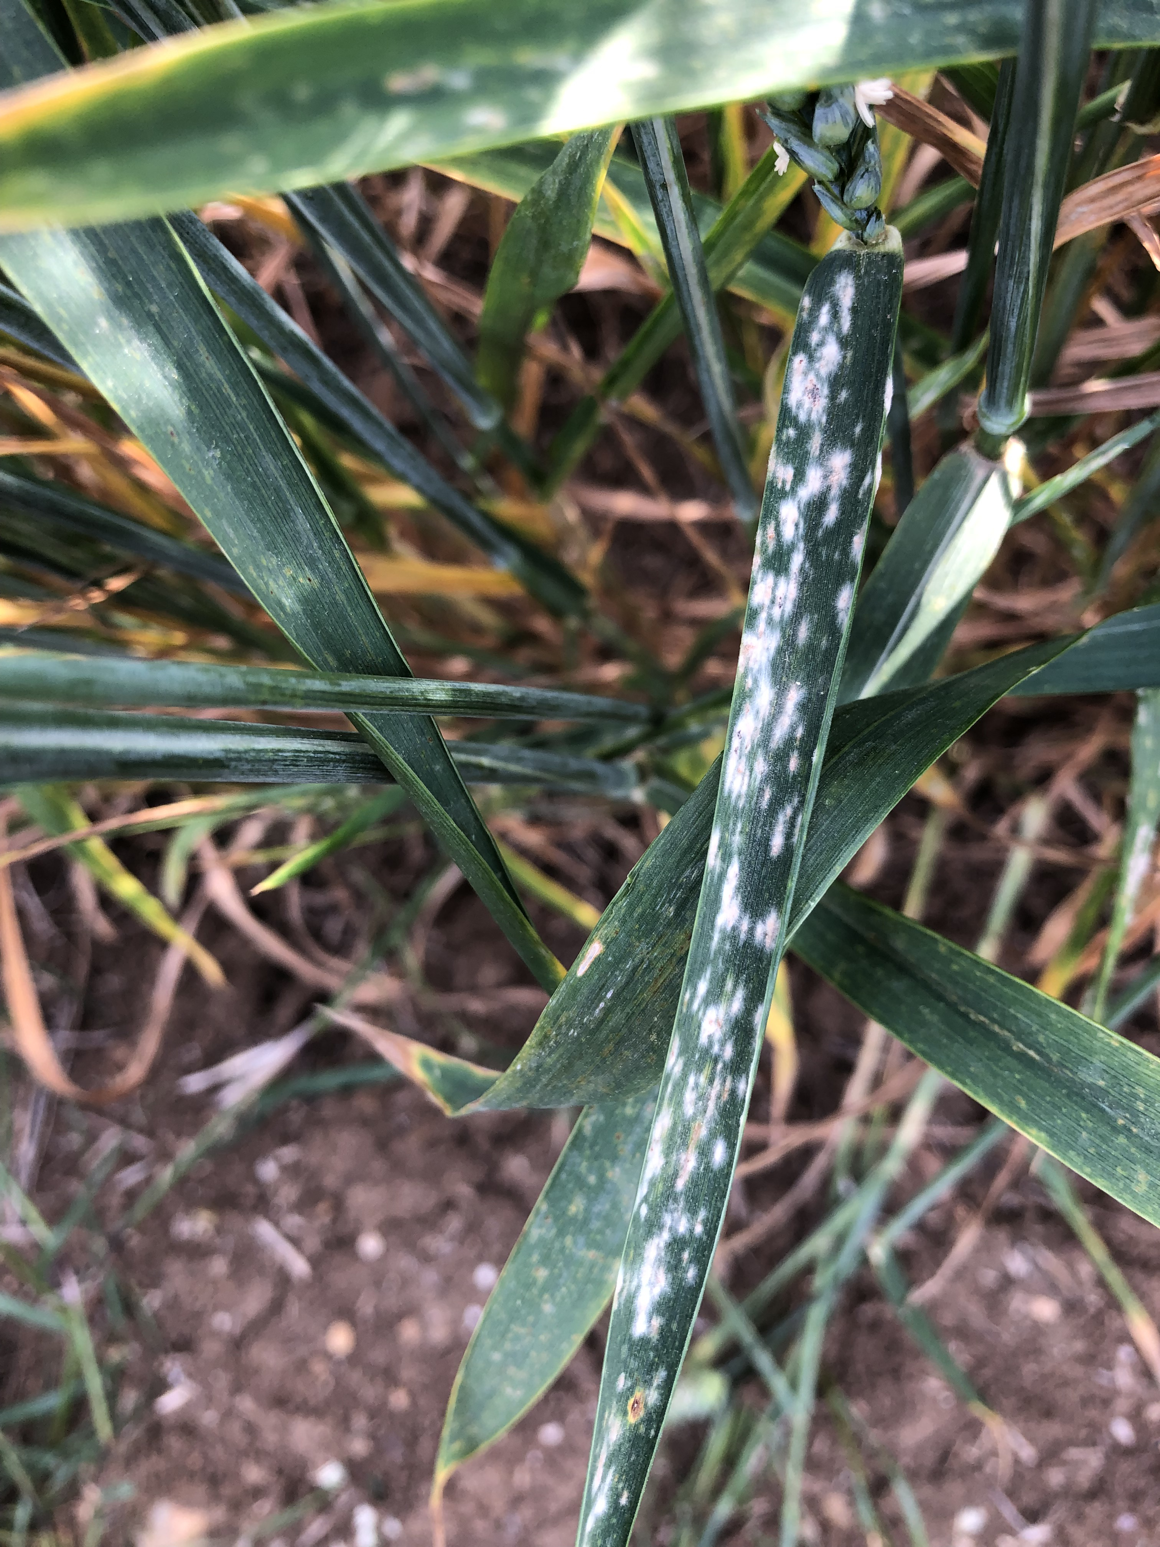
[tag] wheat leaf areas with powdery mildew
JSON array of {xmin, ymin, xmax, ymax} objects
[
  {"xmin": 83, "ymin": 297, "xmax": 367, "ymax": 647},
  {"xmin": 281, "ymin": 0, "xmax": 1042, "ymax": 172},
  {"xmin": 518, "ymin": 1107, "xmax": 678, "ymax": 1329},
  {"xmin": 1102, "ymin": 700, "xmax": 1160, "ymax": 962},
  {"xmin": 580, "ymin": 254, "xmax": 1000, "ymax": 1525},
  {"xmin": 516, "ymin": 887, "xmax": 722, "ymax": 1062},
  {"xmin": 1027, "ymin": 1013, "xmax": 1160, "ymax": 1233}
]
